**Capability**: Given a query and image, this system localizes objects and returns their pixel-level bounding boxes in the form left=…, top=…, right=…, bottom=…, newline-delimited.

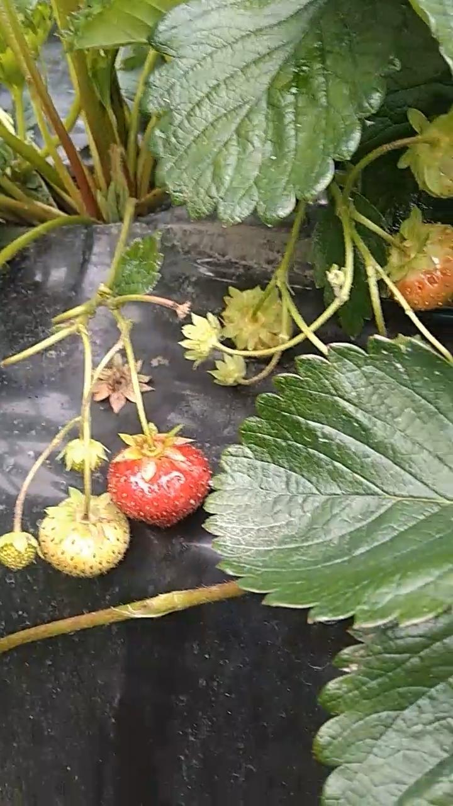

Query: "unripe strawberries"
left=0, top=528, right=43, bottom=579
left=40, top=487, right=135, bottom=587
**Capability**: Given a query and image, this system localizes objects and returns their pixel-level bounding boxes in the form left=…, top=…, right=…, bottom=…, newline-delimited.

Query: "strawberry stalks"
left=112, top=320, right=177, bottom=472
left=246, top=242, right=279, bottom=320
left=8, top=475, right=40, bottom=540
left=194, top=331, right=298, bottom=363
left=376, top=123, right=438, bottom=160
left=365, top=219, right=425, bottom=267
left=74, top=424, right=99, bottom=535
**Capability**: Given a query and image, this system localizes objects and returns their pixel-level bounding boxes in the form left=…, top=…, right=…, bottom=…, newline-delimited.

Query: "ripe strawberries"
left=378, top=211, right=453, bottom=322
left=108, top=434, right=215, bottom=531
